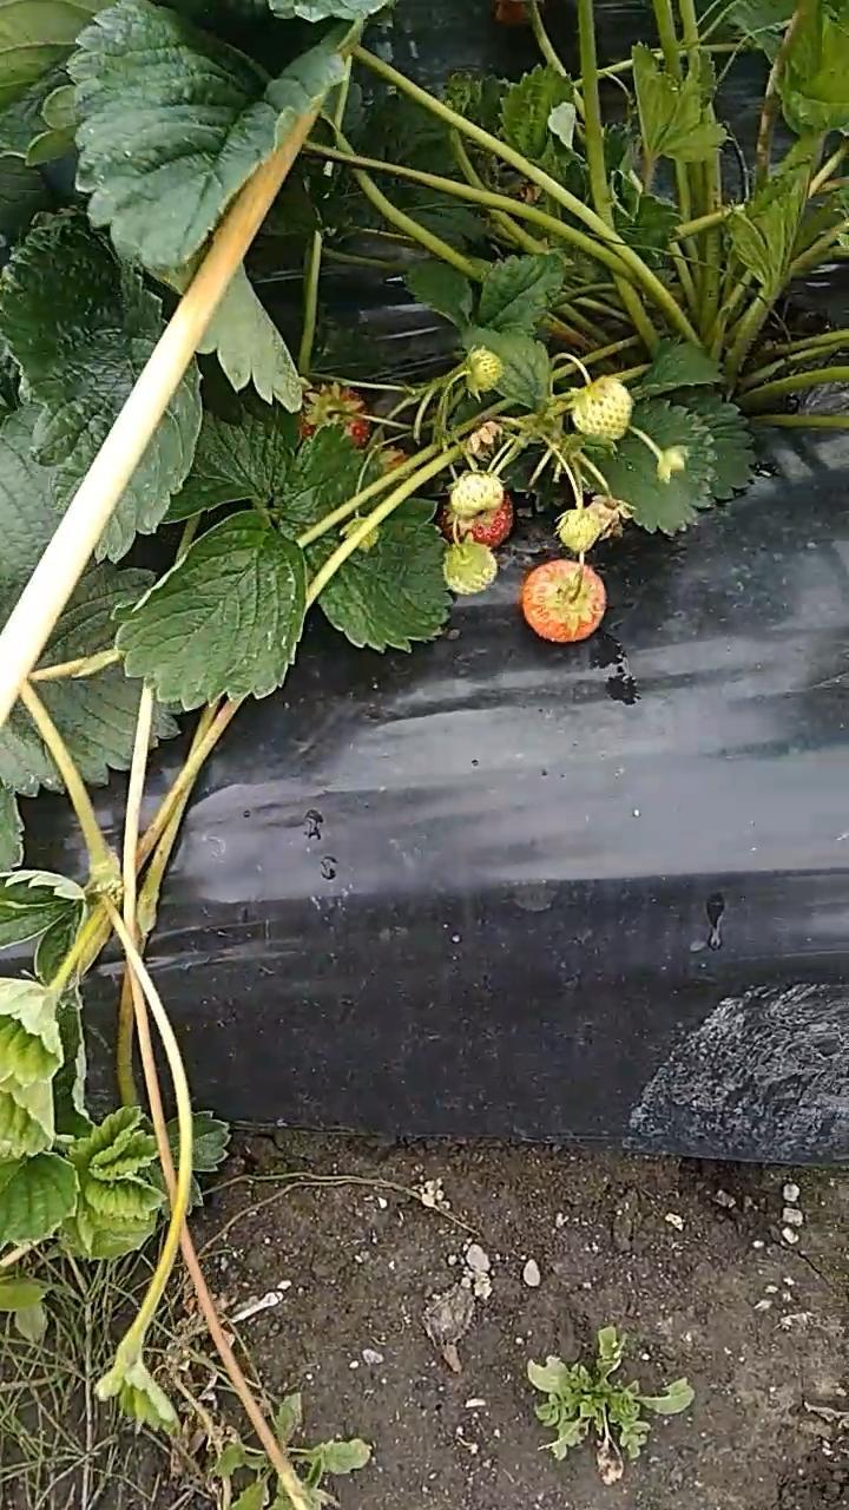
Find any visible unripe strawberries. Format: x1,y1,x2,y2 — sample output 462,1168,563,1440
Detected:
571,377,640,443
519,559,616,644
441,542,501,594
463,345,511,398
556,505,608,554
446,467,508,517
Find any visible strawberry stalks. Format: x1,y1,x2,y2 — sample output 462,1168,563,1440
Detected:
438,371,485,389
560,465,588,522
566,353,607,400
565,539,591,613
350,478,370,527
334,402,424,441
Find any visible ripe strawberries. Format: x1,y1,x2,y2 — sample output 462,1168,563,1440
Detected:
299,366,380,465
436,479,520,552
